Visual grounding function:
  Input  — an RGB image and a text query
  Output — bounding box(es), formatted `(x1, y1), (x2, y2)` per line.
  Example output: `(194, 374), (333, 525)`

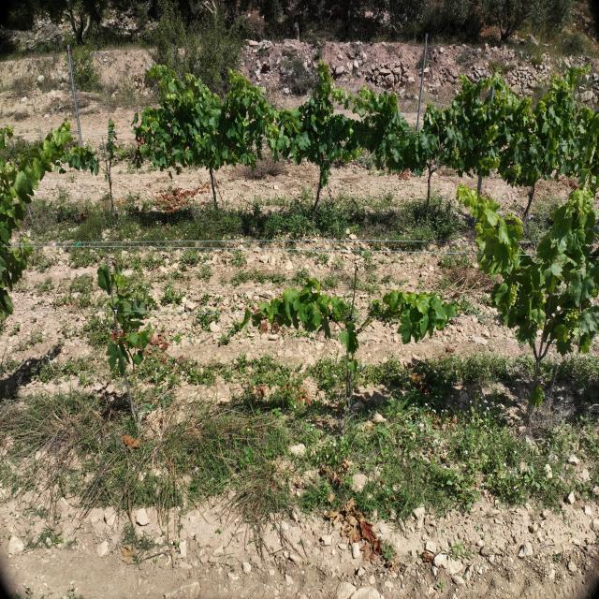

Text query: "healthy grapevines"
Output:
(243, 271), (462, 432)
(86, 248), (163, 438)
(454, 181), (599, 439)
